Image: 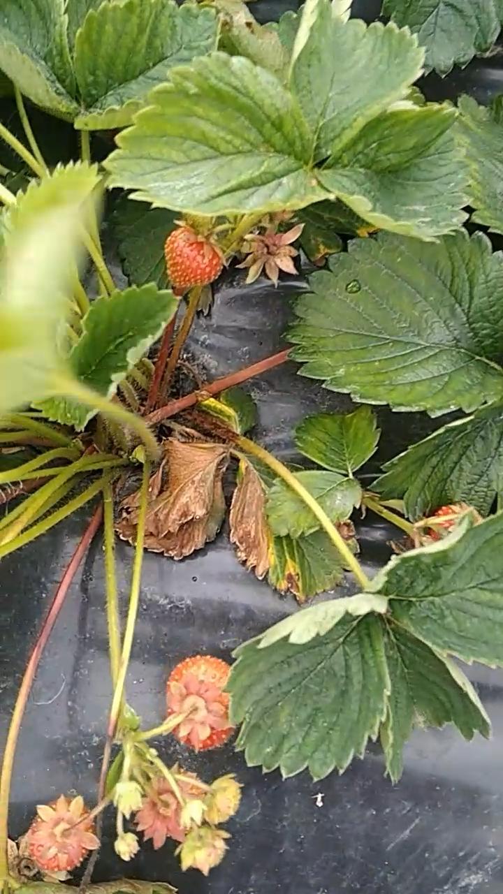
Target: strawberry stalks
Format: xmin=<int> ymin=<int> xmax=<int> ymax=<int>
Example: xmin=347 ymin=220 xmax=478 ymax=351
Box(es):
xmin=55 ymin=806 xmax=95 ymax=843
xmin=143 ymin=691 xmax=205 ymax=741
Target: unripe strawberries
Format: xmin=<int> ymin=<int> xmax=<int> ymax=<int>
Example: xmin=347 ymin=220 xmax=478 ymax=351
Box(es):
xmin=201 ymin=771 xmax=248 ymax=828
xmin=169 ymin=824 xmax=240 ymax=879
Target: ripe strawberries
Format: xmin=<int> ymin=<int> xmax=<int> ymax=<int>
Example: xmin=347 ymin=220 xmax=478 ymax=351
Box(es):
xmin=23 ymin=794 xmax=100 ymax=876
xmin=165 ymin=221 xmax=238 ymax=293
xmin=155 ymin=653 xmax=248 ymax=758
